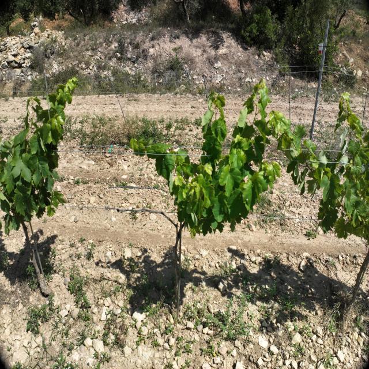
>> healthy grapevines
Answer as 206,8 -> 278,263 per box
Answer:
0,72 -> 81,307
287,85 -> 369,340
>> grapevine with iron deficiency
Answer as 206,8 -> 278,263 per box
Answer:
125,76 -> 283,325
